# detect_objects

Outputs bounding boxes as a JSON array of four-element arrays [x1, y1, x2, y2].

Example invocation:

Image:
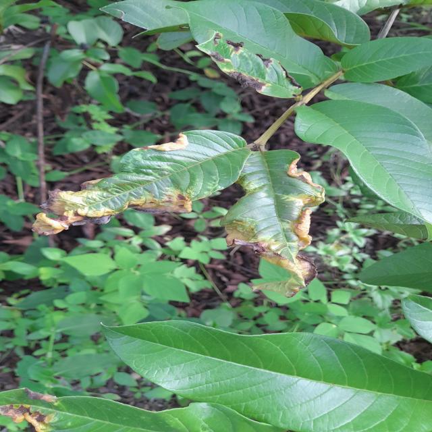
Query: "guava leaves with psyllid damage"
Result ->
[[221, 149, 328, 298], [20, 124, 255, 239]]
